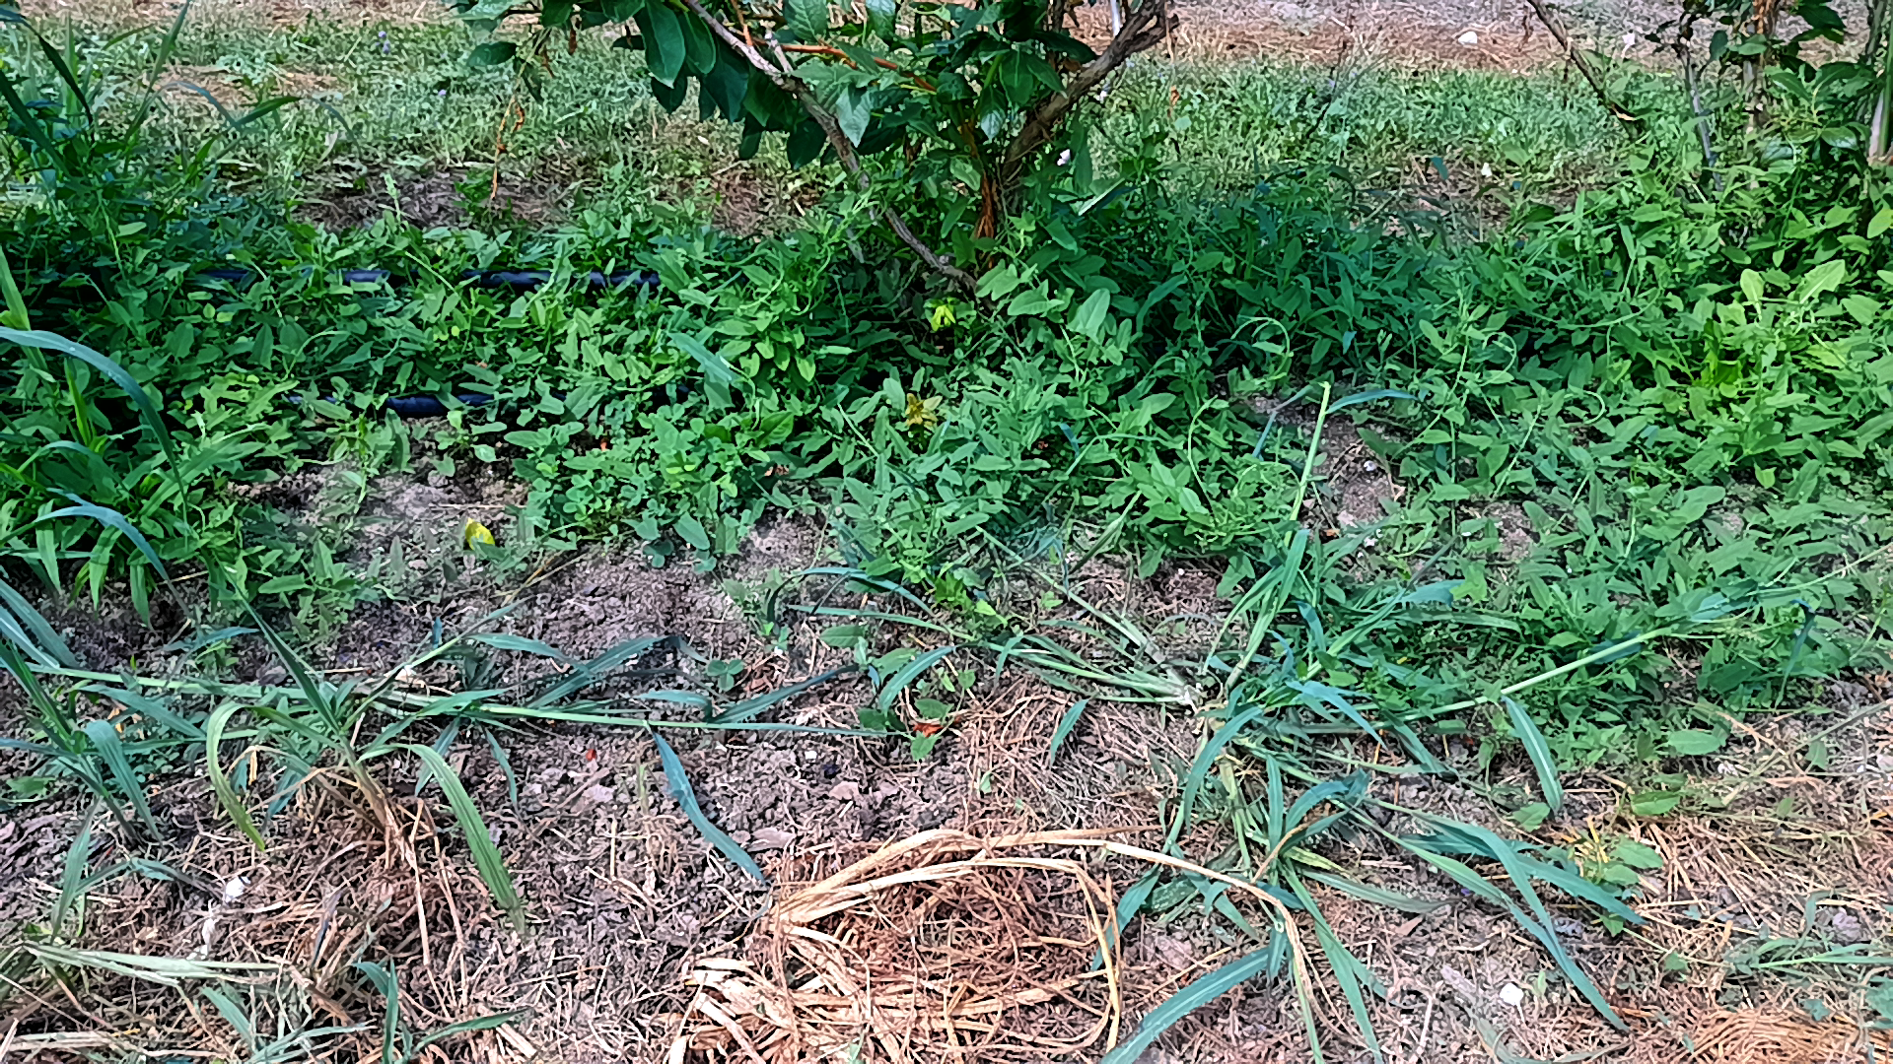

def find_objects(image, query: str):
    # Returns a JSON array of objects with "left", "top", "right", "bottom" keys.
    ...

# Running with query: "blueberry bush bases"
[
  {"left": 1595, "top": 44, "right": 1893, "bottom": 389},
  {"left": 739, "top": 89, "right": 1132, "bottom": 426}
]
